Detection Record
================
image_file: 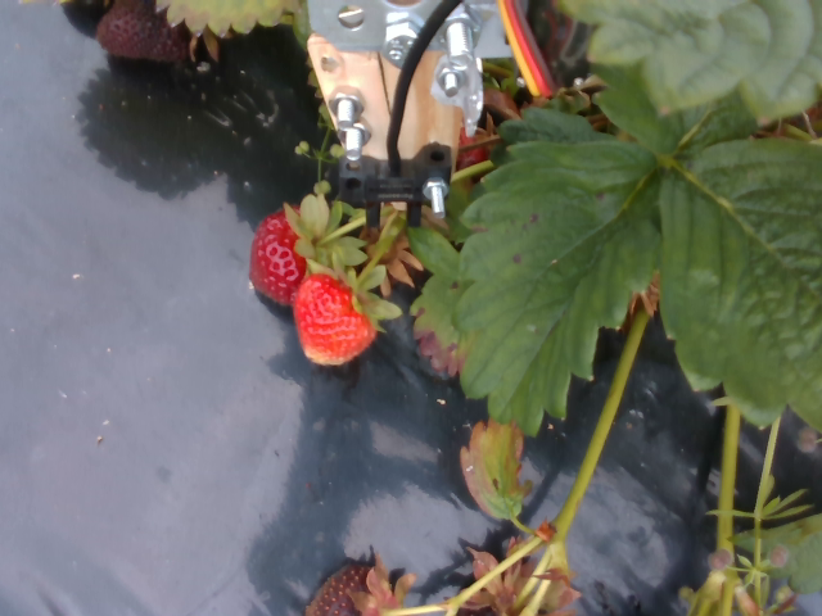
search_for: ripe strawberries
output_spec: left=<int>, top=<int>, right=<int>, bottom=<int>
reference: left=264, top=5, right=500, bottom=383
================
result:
left=241, top=210, right=330, bottom=291
left=298, top=278, right=381, bottom=363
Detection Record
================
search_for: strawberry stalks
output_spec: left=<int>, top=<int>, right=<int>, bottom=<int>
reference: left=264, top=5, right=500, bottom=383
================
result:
left=289, top=207, right=392, bottom=250
left=339, top=219, right=404, bottom=305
